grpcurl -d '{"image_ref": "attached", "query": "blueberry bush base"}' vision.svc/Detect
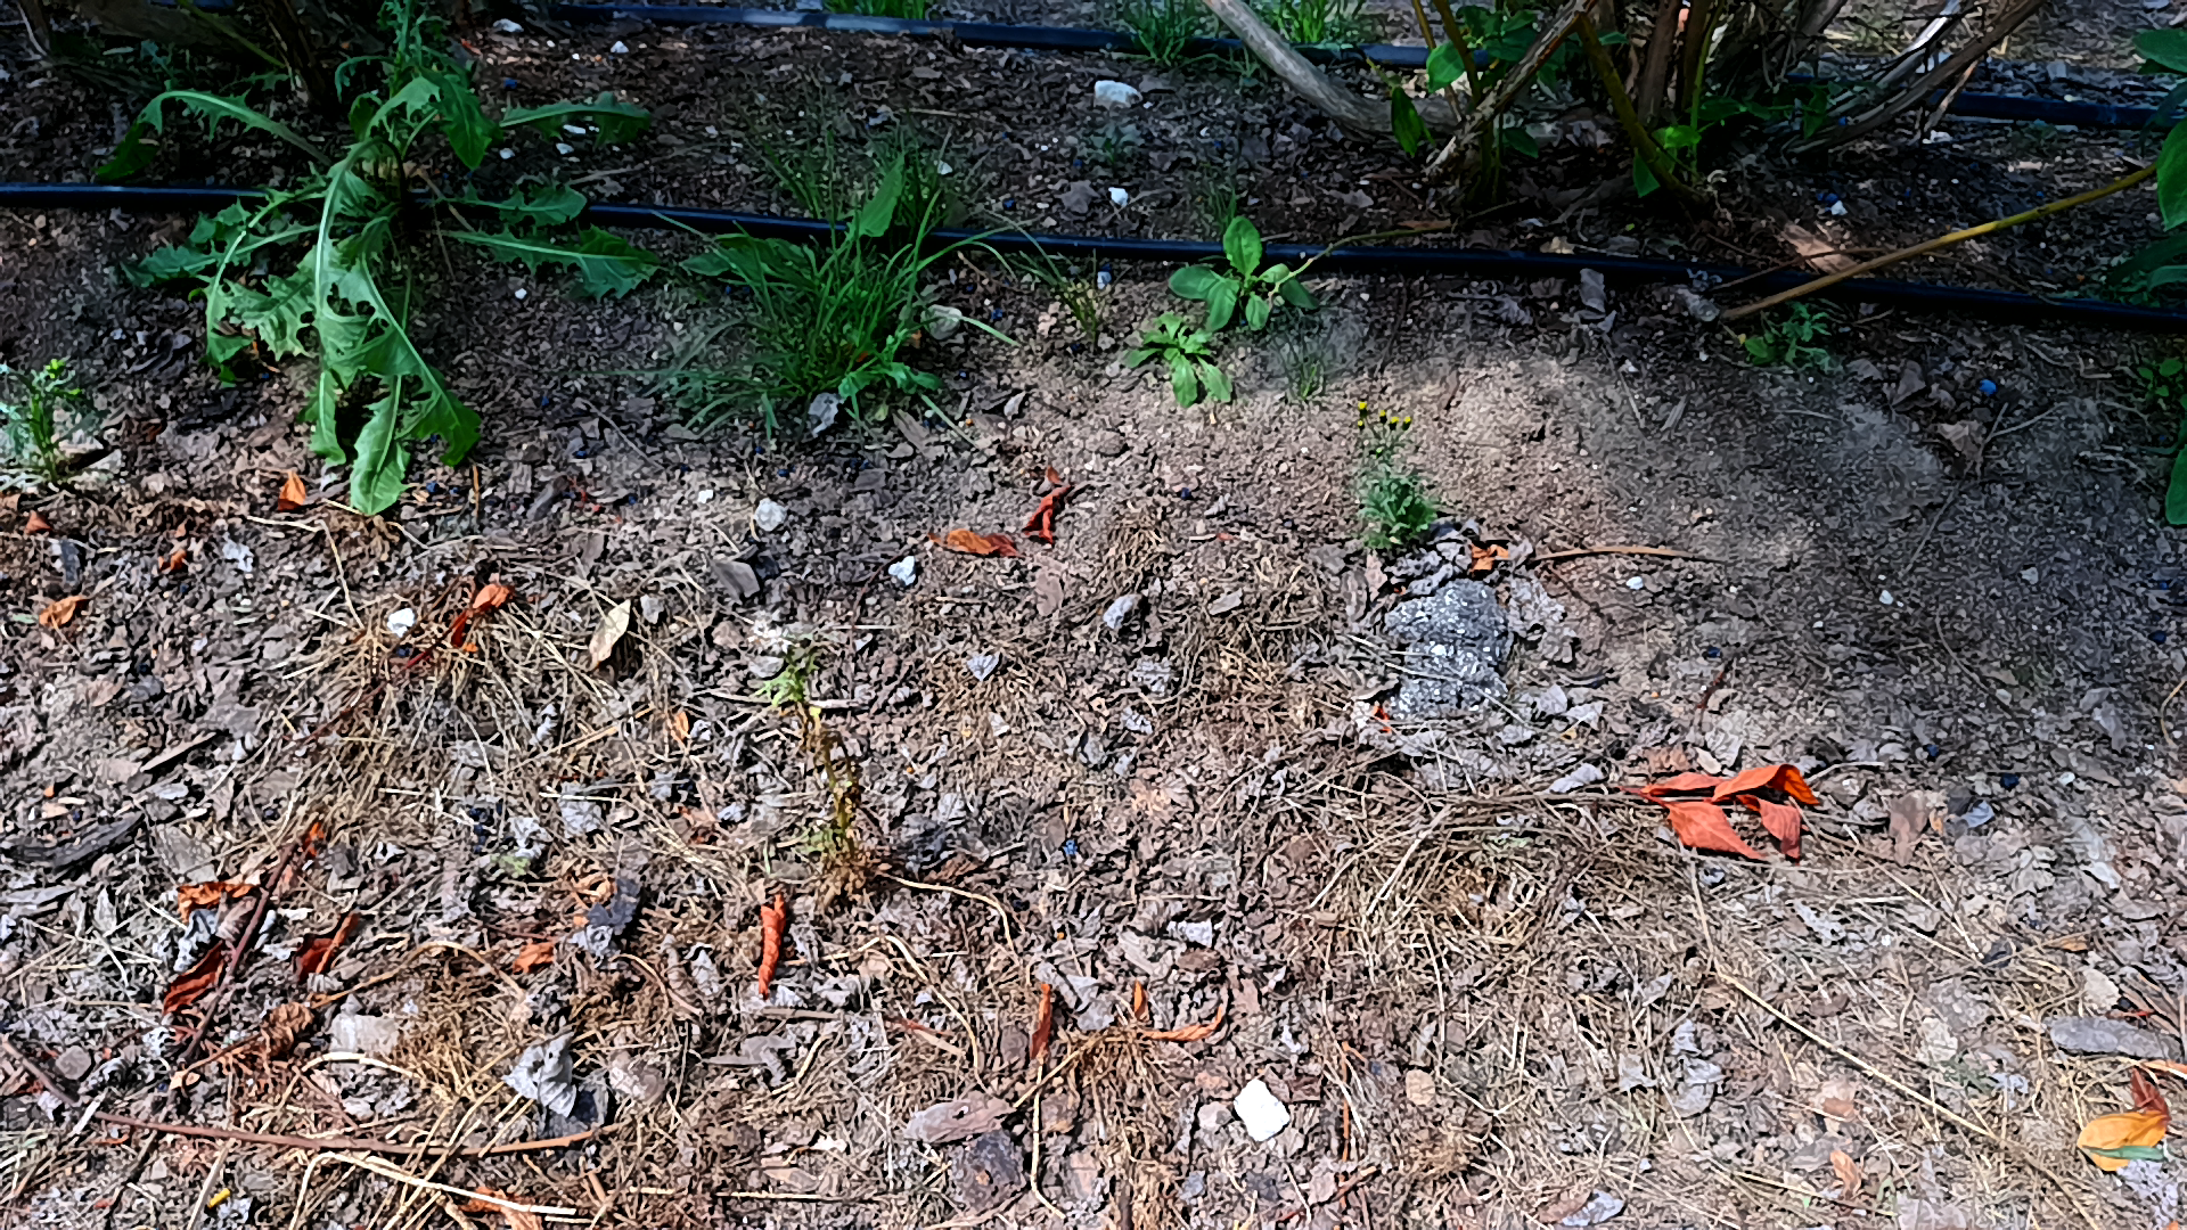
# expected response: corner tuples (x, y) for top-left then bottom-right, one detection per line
(1353, 1), (2082, 331)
